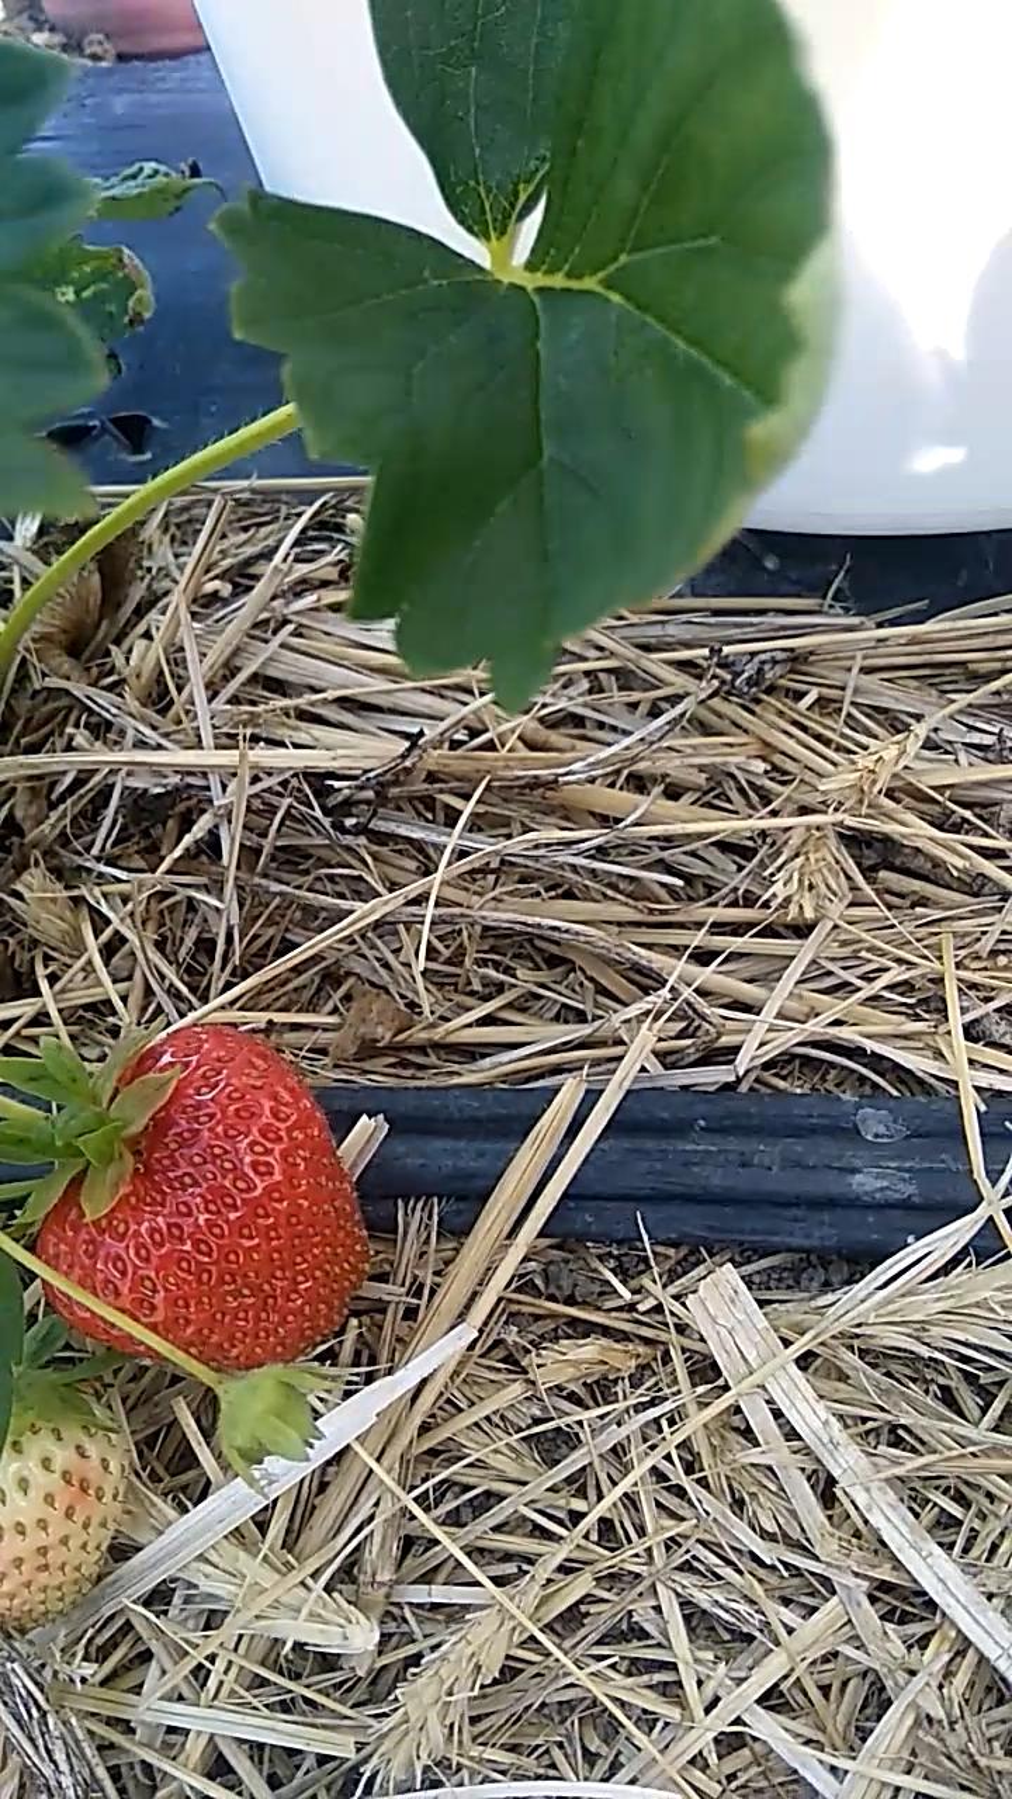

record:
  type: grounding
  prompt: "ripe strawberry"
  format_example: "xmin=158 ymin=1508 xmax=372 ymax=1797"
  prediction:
xmin=25 ymin=1027 xmax=379 ymax=1386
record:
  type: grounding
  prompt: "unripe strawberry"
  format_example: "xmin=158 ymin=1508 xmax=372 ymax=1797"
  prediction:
xmin=0 ymin=1327 xmax=153 ymax=1667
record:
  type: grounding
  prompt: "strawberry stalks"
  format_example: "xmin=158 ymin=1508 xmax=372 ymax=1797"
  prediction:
xmin=0 ymin=1054 xmax=146 ymax=1196
xmin=174 ymin=1332 xmax=356 ymax=1495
